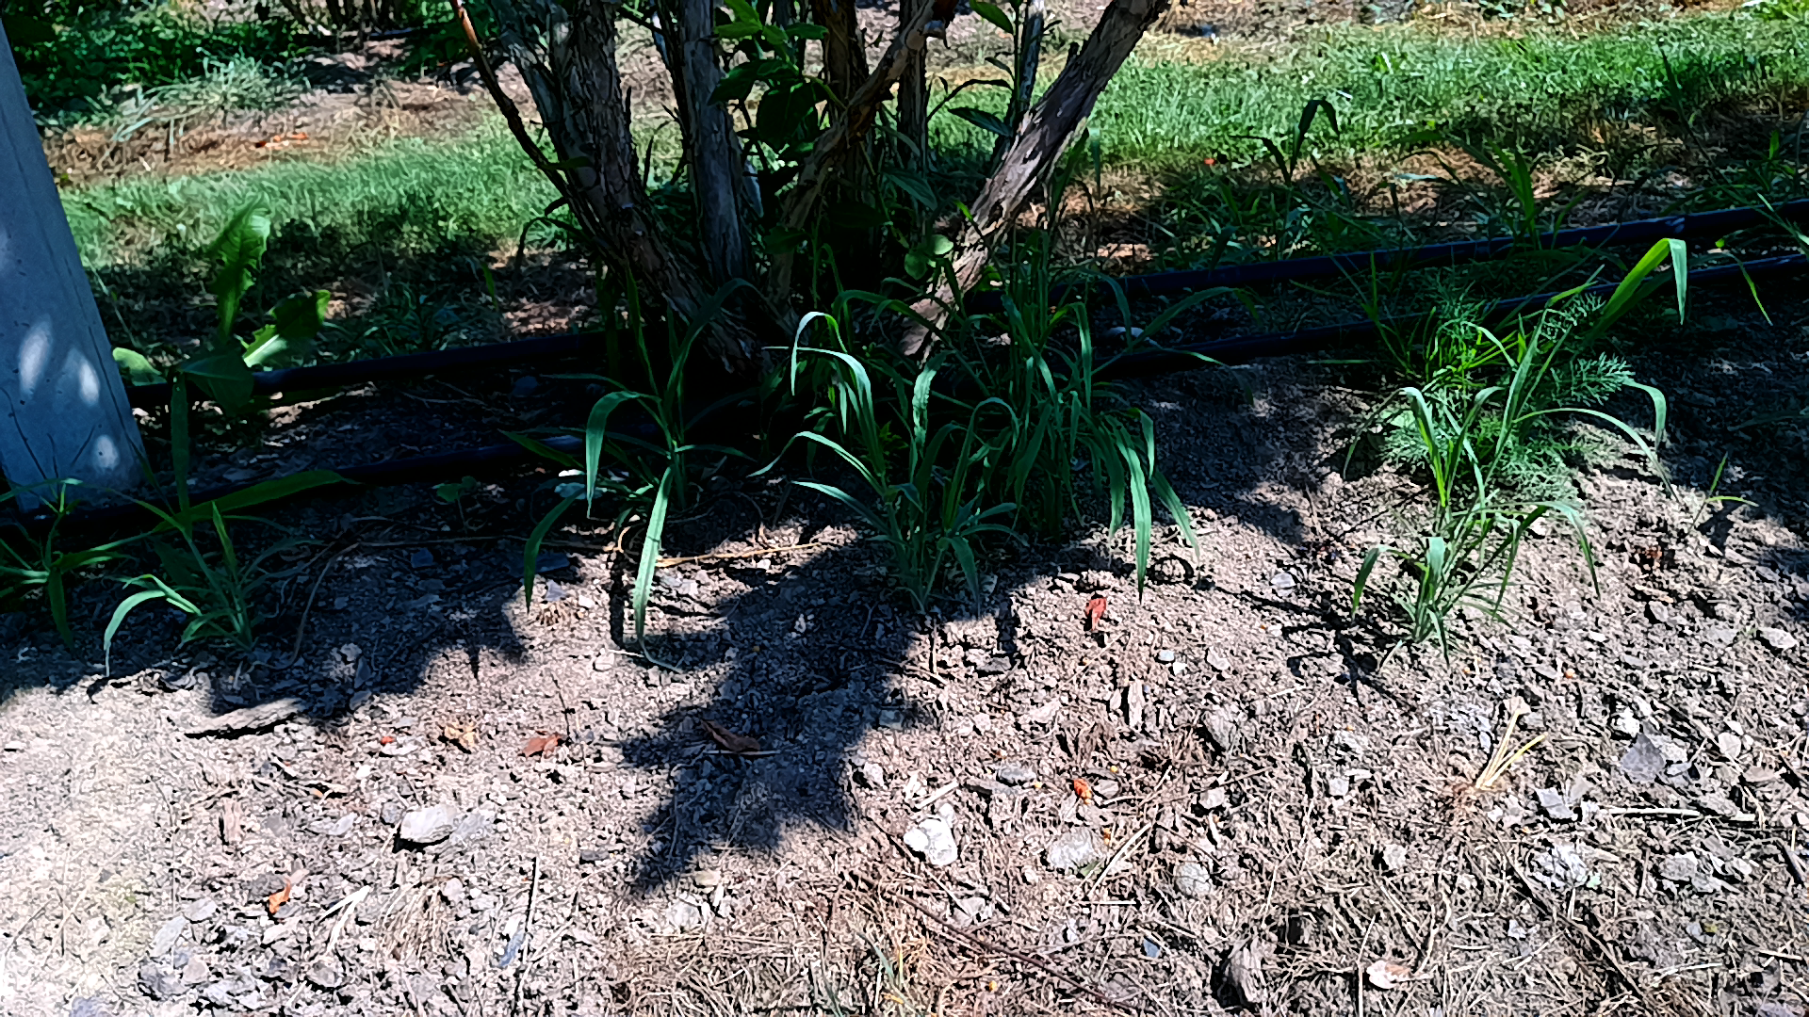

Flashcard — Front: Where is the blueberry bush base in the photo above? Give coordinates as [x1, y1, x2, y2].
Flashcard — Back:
[478, 62, 1165, 622]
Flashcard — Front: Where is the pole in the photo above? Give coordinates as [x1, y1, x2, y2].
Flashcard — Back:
[0, 16, 187, 580]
